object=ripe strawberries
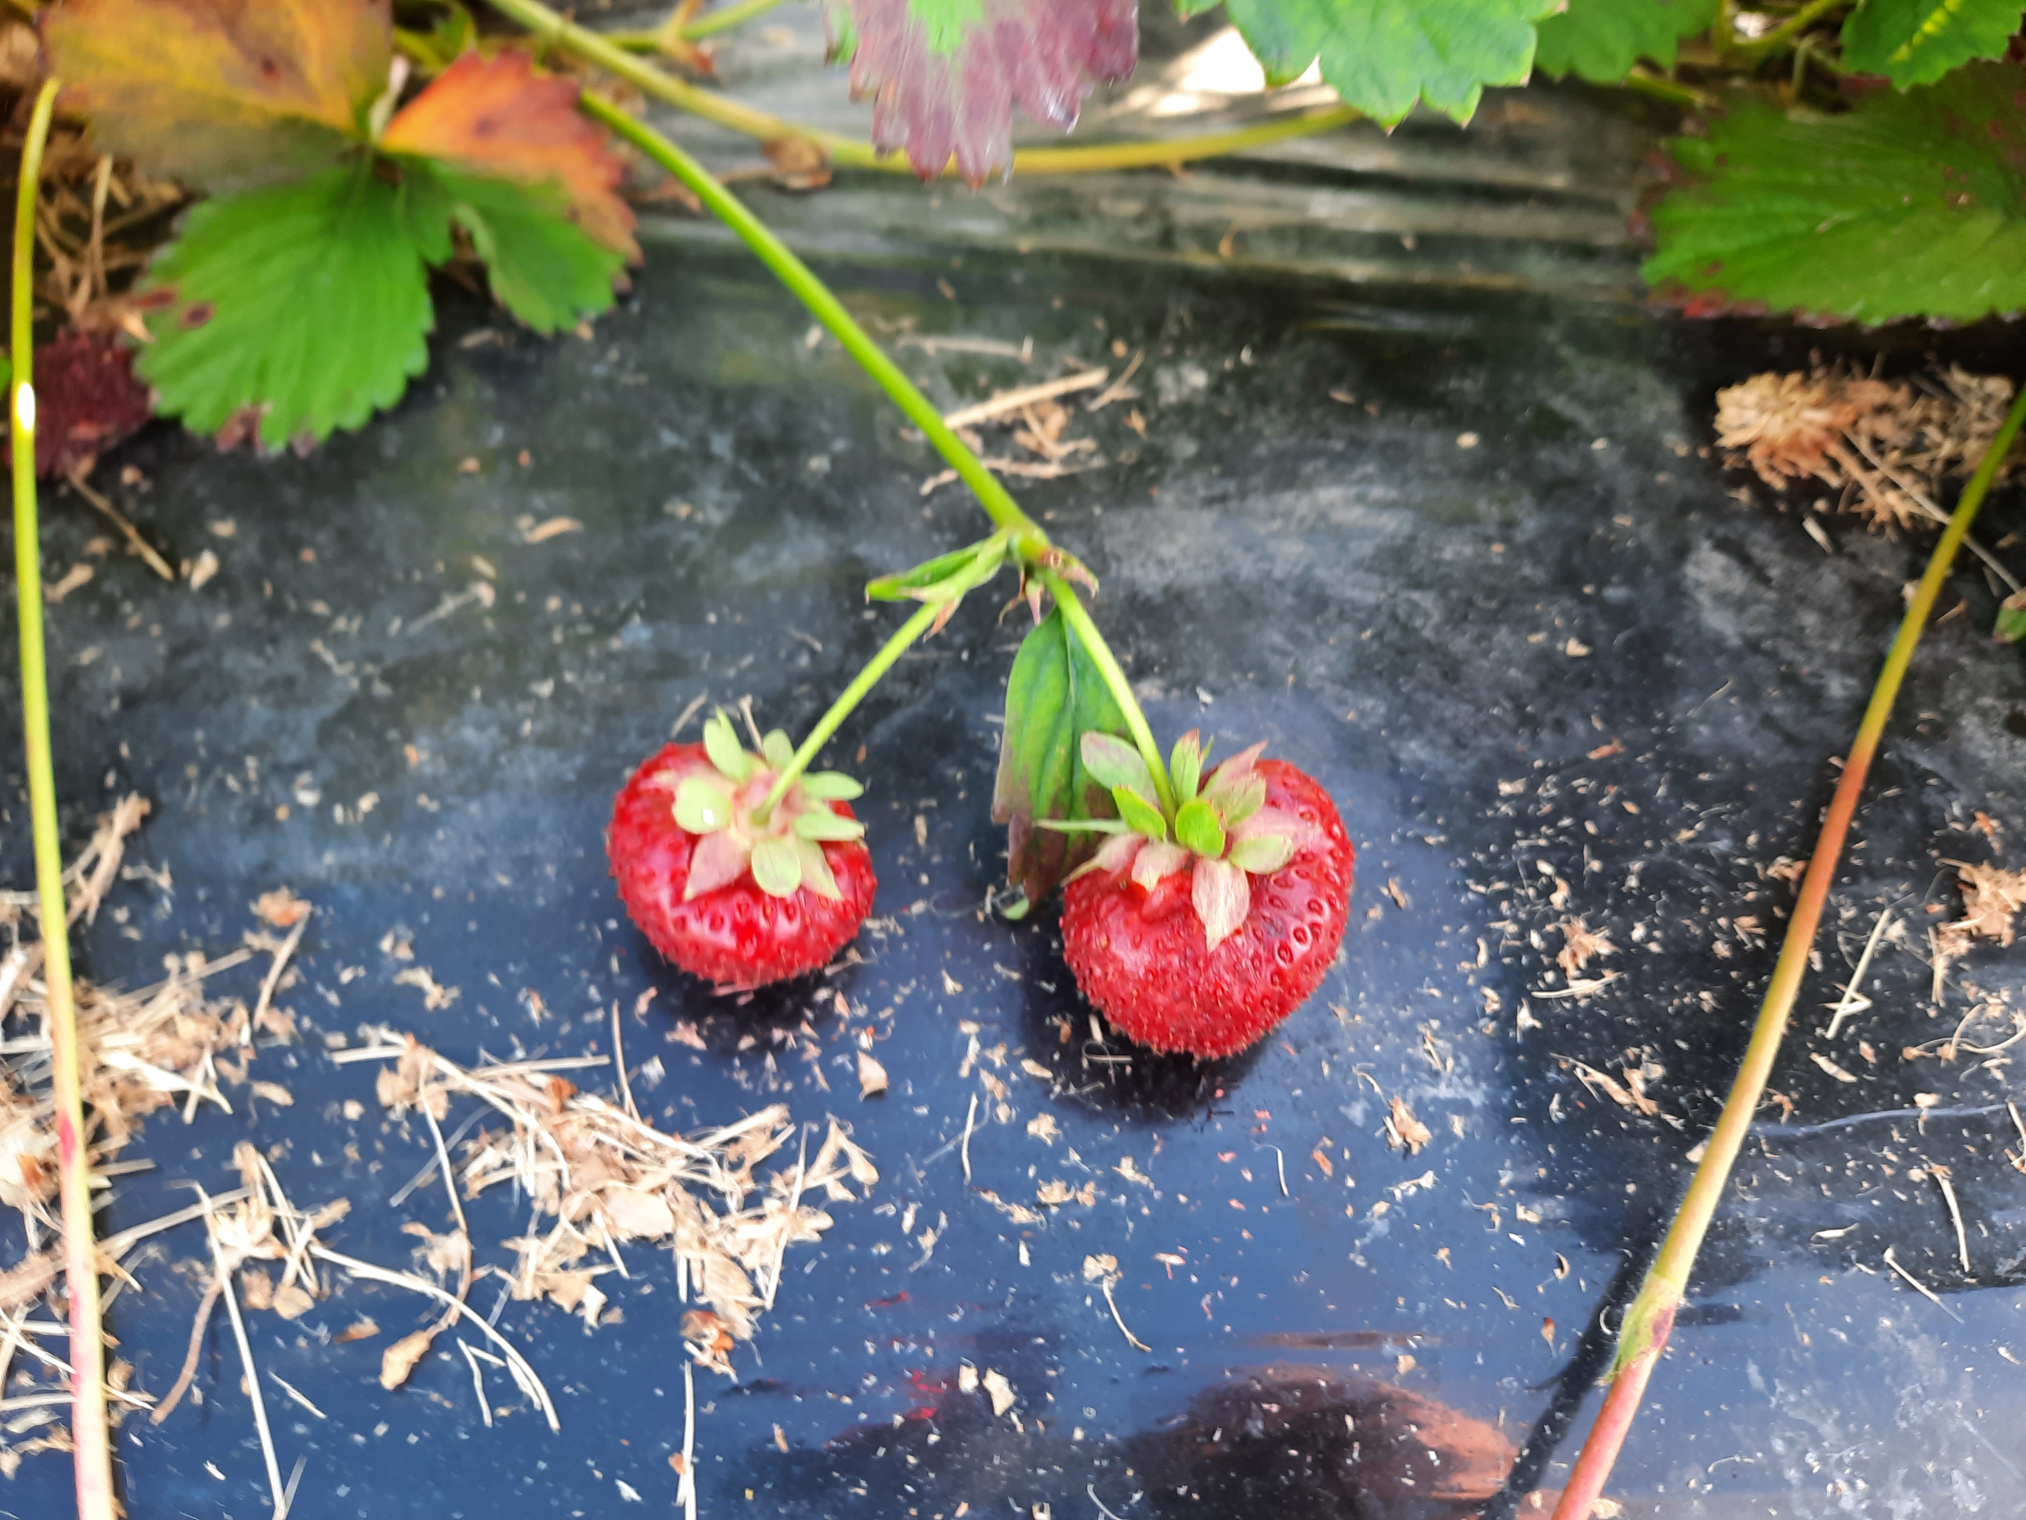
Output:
[621,749,852,986]
[1060,767,1364,1055]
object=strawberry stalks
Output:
[739,594,961,848]
[1065,560,1230,870]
